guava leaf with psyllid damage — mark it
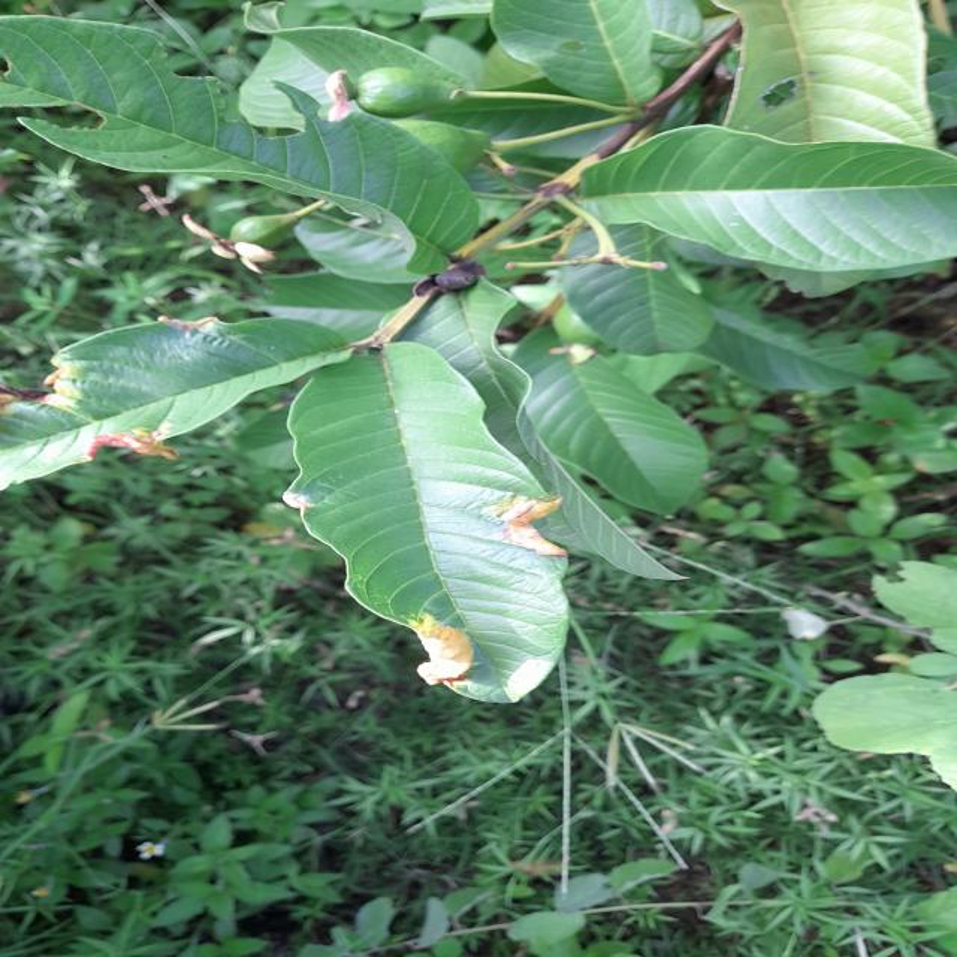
[277,342,608,716]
